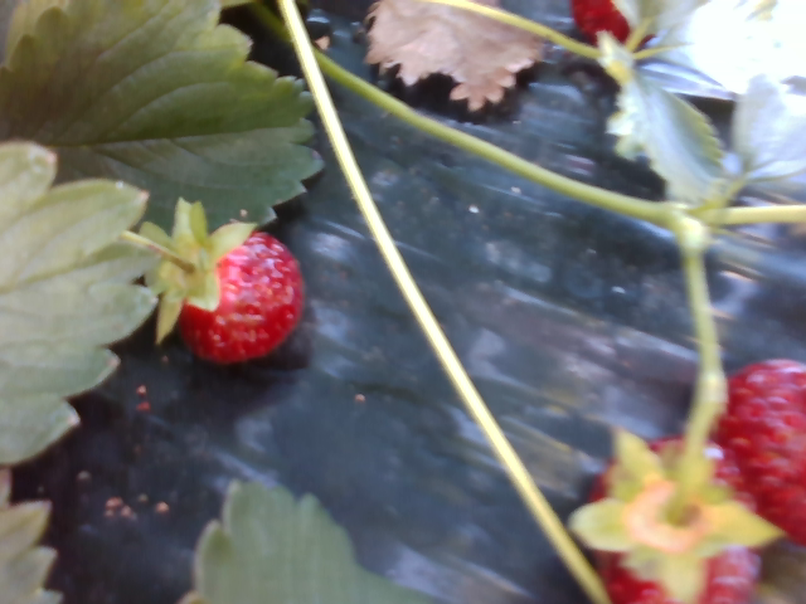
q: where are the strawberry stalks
[655,326,725,457]
[126,216,207,290]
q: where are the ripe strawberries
[709,362,806,544]
[569,1,666,53]
[560,435,758,604]
[152,228,313,366]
